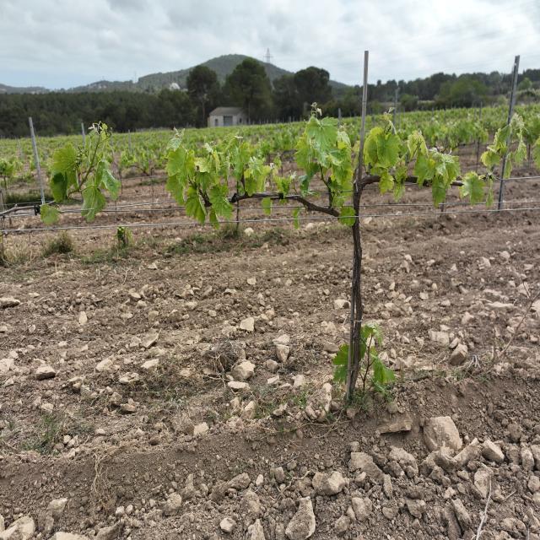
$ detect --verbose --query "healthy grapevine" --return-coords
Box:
[160,121,494,426]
